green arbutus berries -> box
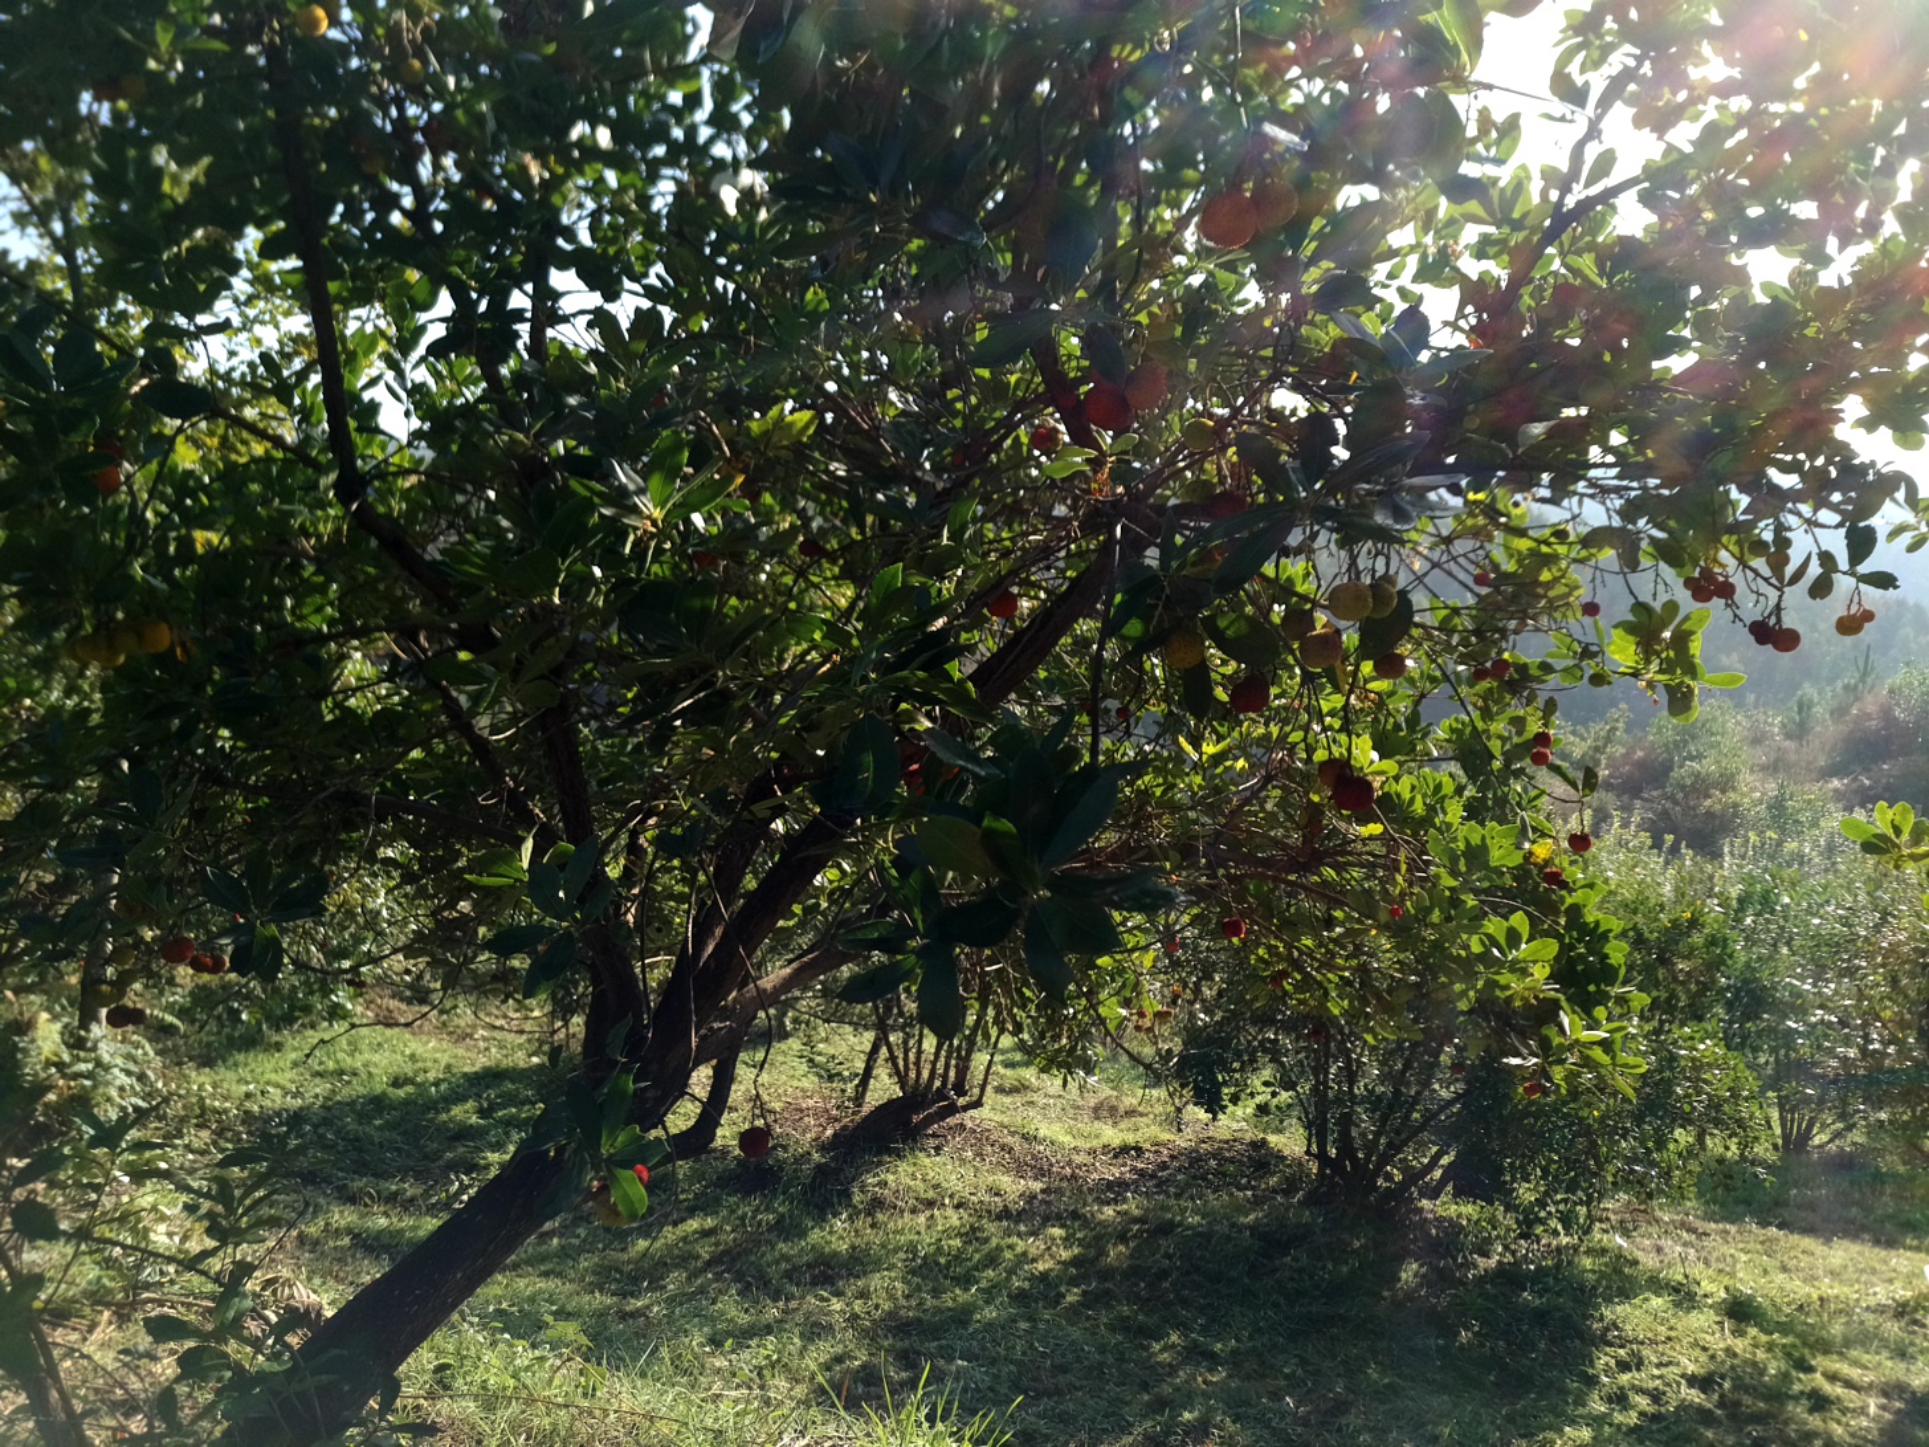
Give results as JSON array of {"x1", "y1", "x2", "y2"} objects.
[
  {"x1": 1328, "y1": 580, "x2": 1371, "y2": 619},
  {"x1": 1364, "y1": 582, "x2": 1399, "y2": 618},
  {"x1": 109, "y1": 944, "x2": 136, "y2": 967},
  {"x1": 87, "y1": 979, "x2": 117, "y2": 1008},
  {"x1": 1771, "y1": 535, "x2": 1793, "y2": 551},
  {"x1": 73, "y1": 630, "x2": 109, "y2": 662},
  {"x1": 1747, "y1": 539, "x2": 1771, "y2": 557},
  {"x1": 1181, "y1": 415, "x2": 1218, "y2": 450},
  {"x1": 1766, "y1": 549, "x2": 1790, "y2": 570},
  {"x1": 1252, "y1": 176, "x2": 1300, "y2": 233}
]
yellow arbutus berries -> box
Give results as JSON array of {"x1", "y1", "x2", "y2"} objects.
[
  {"x1": 1199, "y1": 192, "x2": 1258, "y2": 250},
  {"x1": 1860, "y1": 609, "x2": 1876, "y2": 623},
  {"x1": 1835, "y1": 613, "x2": 1864, "y2": 636},
  {"x1": 1377, "y1": 650, "x2": 1405, "y2": 681},
  {"x1": 137, "y1": 616, "x2": 172, "y2": 655},
  {"x1": 1162, "y1": 630, "x2": 1204, "y2": 671},
  {"x1": 1300, "y1": 630, "x2": 1342, "y2": 668},
  {"x1": 1123, "y1": 362, "x2": 1168, "y2": 412}
]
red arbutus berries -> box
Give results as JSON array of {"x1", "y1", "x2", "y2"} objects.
[
  {"x1": 1474, "y1": 572, "x2": 1490, "y2": 586},
  {"x1": 1771, "y1": 627, "x2": 1802, "y2": 653},
  {"x1": 1165, "y1": 937, "x2": 1181, "y2": 952},
  {"x1": 988, "y1": 591, "x2": 1018, "y2": 618},
  {"x1": 1582, "y1": 601, "x2": 1600, "y2": 617},
  {"x1": 1030, "y1": 427, "x2": 1059, "y2": 452},
  {"x1": 1714, "y1": 580, "x2": 1737, "y2": 598},
  {"x1": 161, "y1": 937, "x2": 194, "y2": 964},
  {"x1": 1082, "y1": 383, "x2": 1133, "y2": 432},
  {"x1": 1524, "y1": 1082, "x2": 1543, "y2": 1097},
  {"x1": 1222, "y1": 918, "x2": 1244, "y2": 938},
  {"x1": 1533, "y1": 731, "x2": 1551, "y2": 747},
  {"x1": 105, "y1": 1003, "x2": 130, "y2": 1029},
  {"x1": 1543, "y1": 868, "x2": 1562, "y2": 887},
  {"x1": 1691, "y1": 585, "x2": 1714, "y2": 603},
  {"x1": 1492, "y1": 658, "x2": 1511, "y2": 678},
  {"x1": 1531, "y1": 748, "x2": 1550, "y2": 767},
  {"x1": 739, "y1": 1126, "x2": 769, "y2": 1156},
  {"x1": 95, "y1": 459, "x2": 122, "y2": 490},
  {"x1": 190, "y1": 955, "x2": 214, "y2": 972},
  {"x1": 1754, "y1": 627, "x2": 1776, "y2": 646},
  {"x1": 1473, "y1": 669, "x2": 1488, "y2": 681},
  {"x1": 1211, "y1": 491, "x2": 1247, "y2": 519},
  {"x1": 1232, "y1": 679, "x2": 1271, "y2": 714},
  {"x1": 1388, "y1": 904, "x2": 1403, "y2": 918},
  {"x1": 1332, "y1": 776, "x2": 1374, "y2": 811},
  {"x1": 1115, "y1": 707, "x2": 1128, "y2": 719},
  {"x1": 1568, "y1": 832, "x2": 1591, "y2": 853}
]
